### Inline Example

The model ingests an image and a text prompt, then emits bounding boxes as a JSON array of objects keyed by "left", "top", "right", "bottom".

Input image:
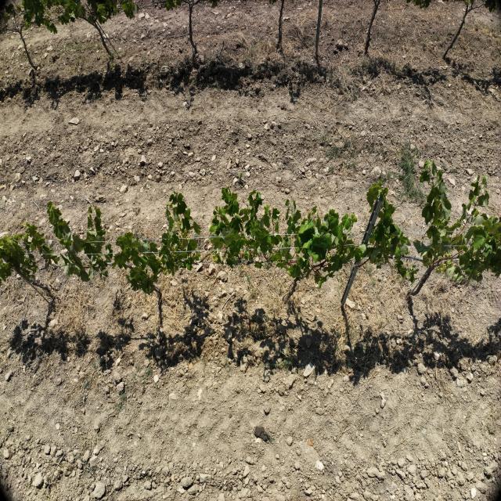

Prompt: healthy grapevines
[
  {"left": 106, "top": 179, "right": 210, "bottom": 310},
  {"left": 0, "top": 196, "right": 110, "bottom": 314},
  {"left": 207, "top": 184, "right": 368, "bottom": 312},
  {"left": 364, "top": 158, "right": 501, "bottom": 312}
]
